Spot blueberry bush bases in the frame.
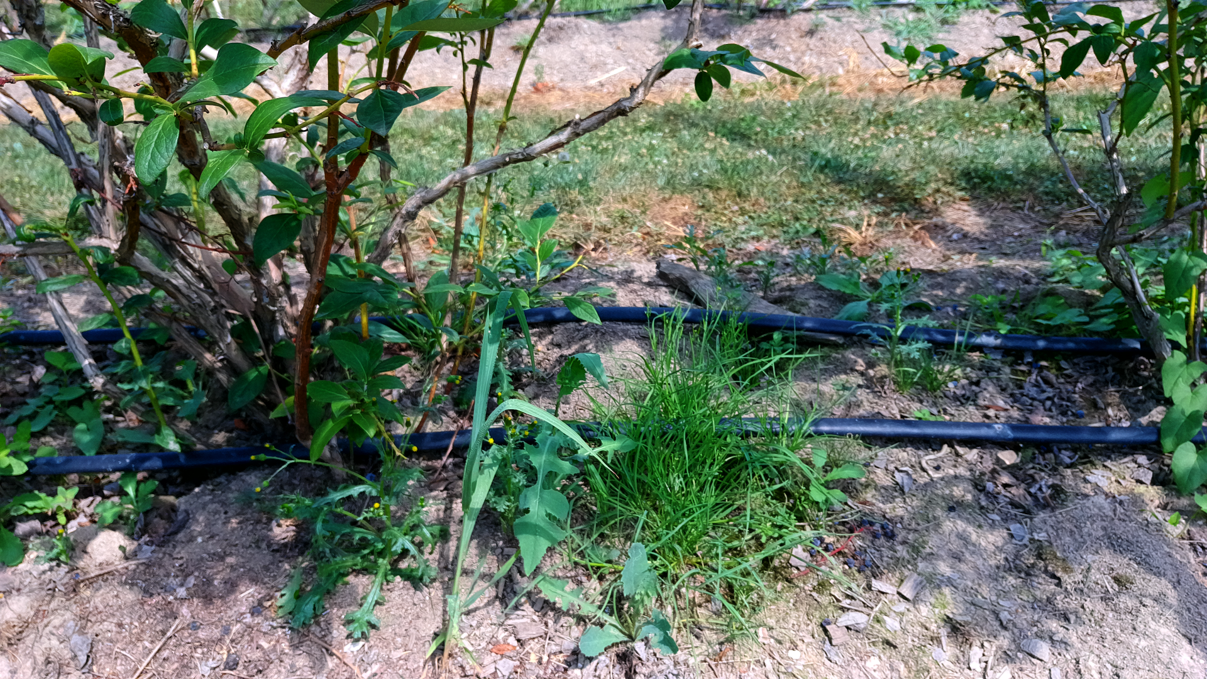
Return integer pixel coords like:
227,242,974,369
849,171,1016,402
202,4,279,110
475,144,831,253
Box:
1062,193,1207,470
38,198,431,522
